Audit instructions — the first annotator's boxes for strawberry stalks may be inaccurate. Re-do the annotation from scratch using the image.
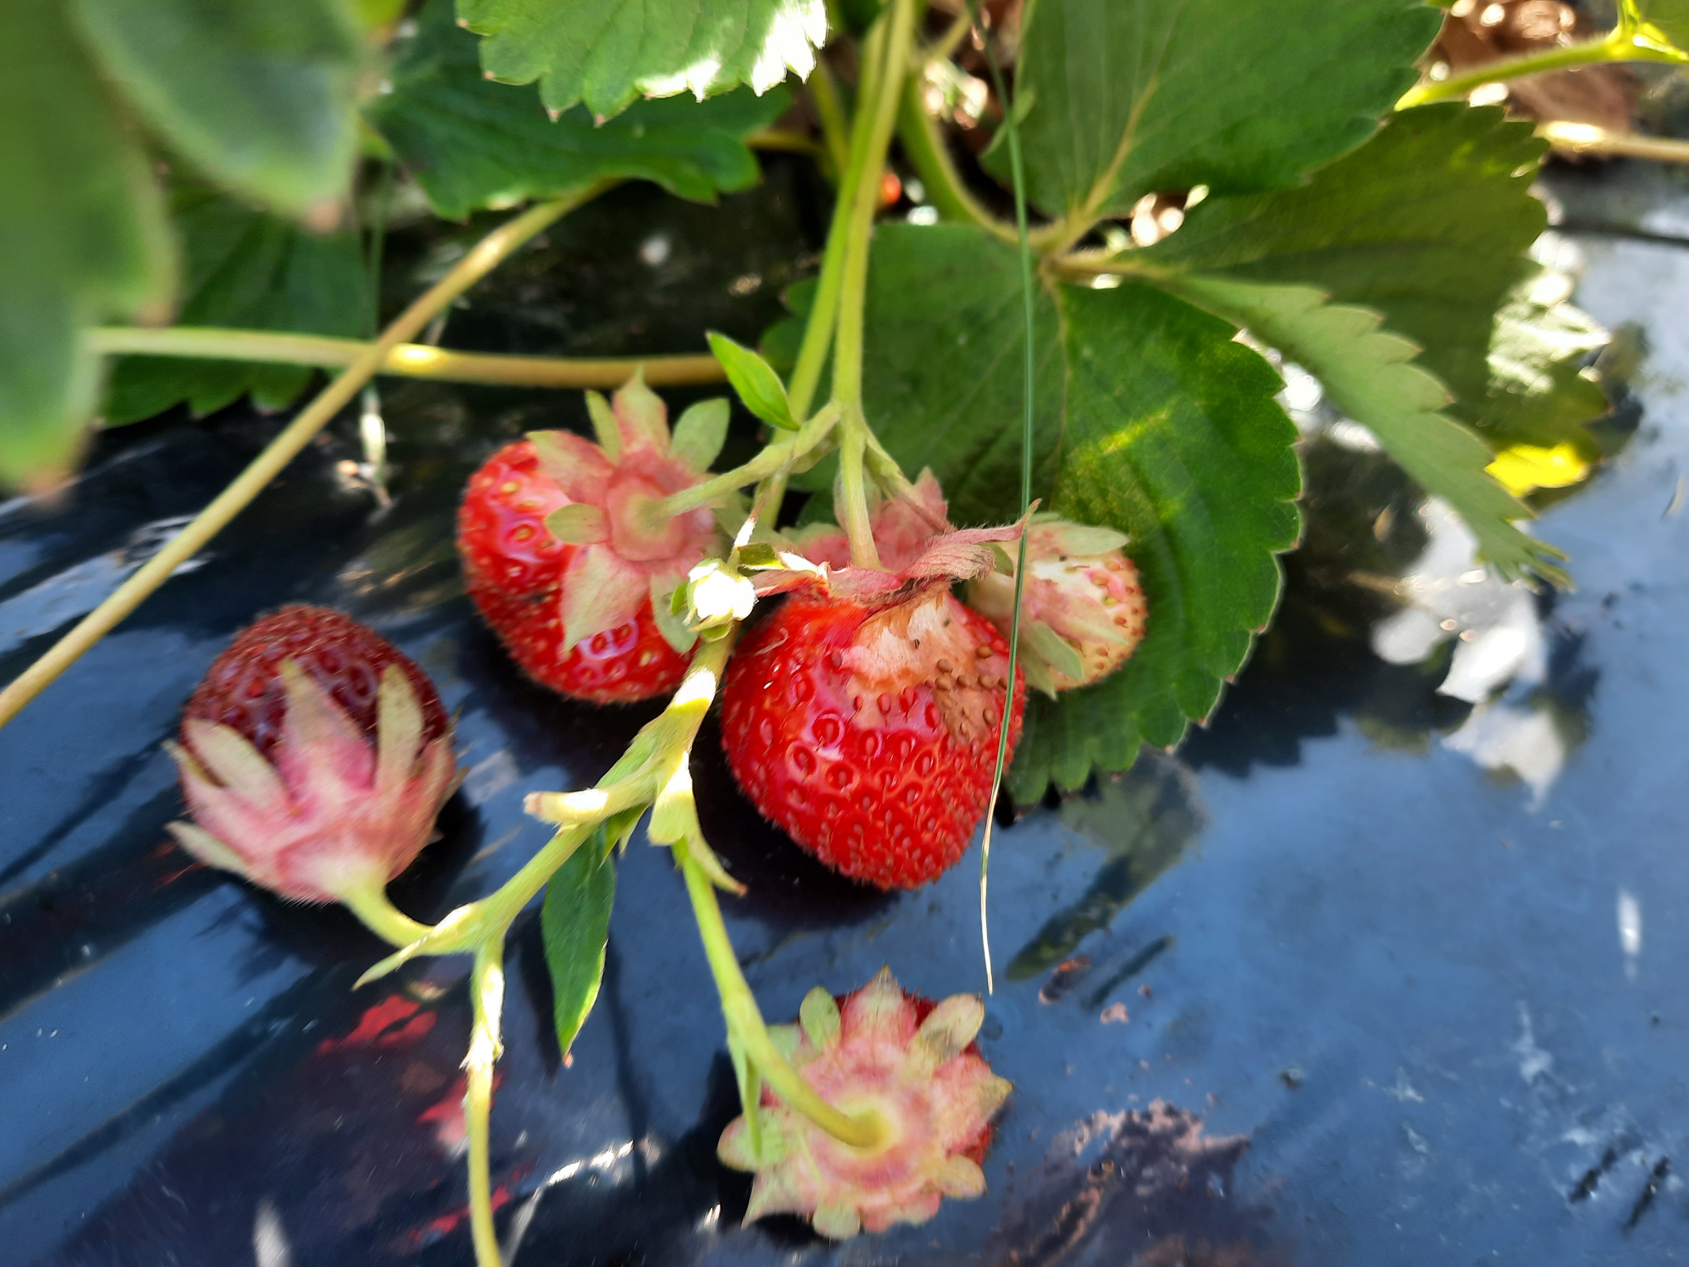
[281,837,501,957]
[743,1029,883,1141]
[610,417,813,532]
[830,409,877,638]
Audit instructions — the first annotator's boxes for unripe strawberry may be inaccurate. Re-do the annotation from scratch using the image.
[915,498,1129,702]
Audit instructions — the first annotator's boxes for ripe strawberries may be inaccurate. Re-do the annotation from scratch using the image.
[469,445,694,677]
[200,632,404,884]
[760,557,985,878]
[764,1021,966,1227]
